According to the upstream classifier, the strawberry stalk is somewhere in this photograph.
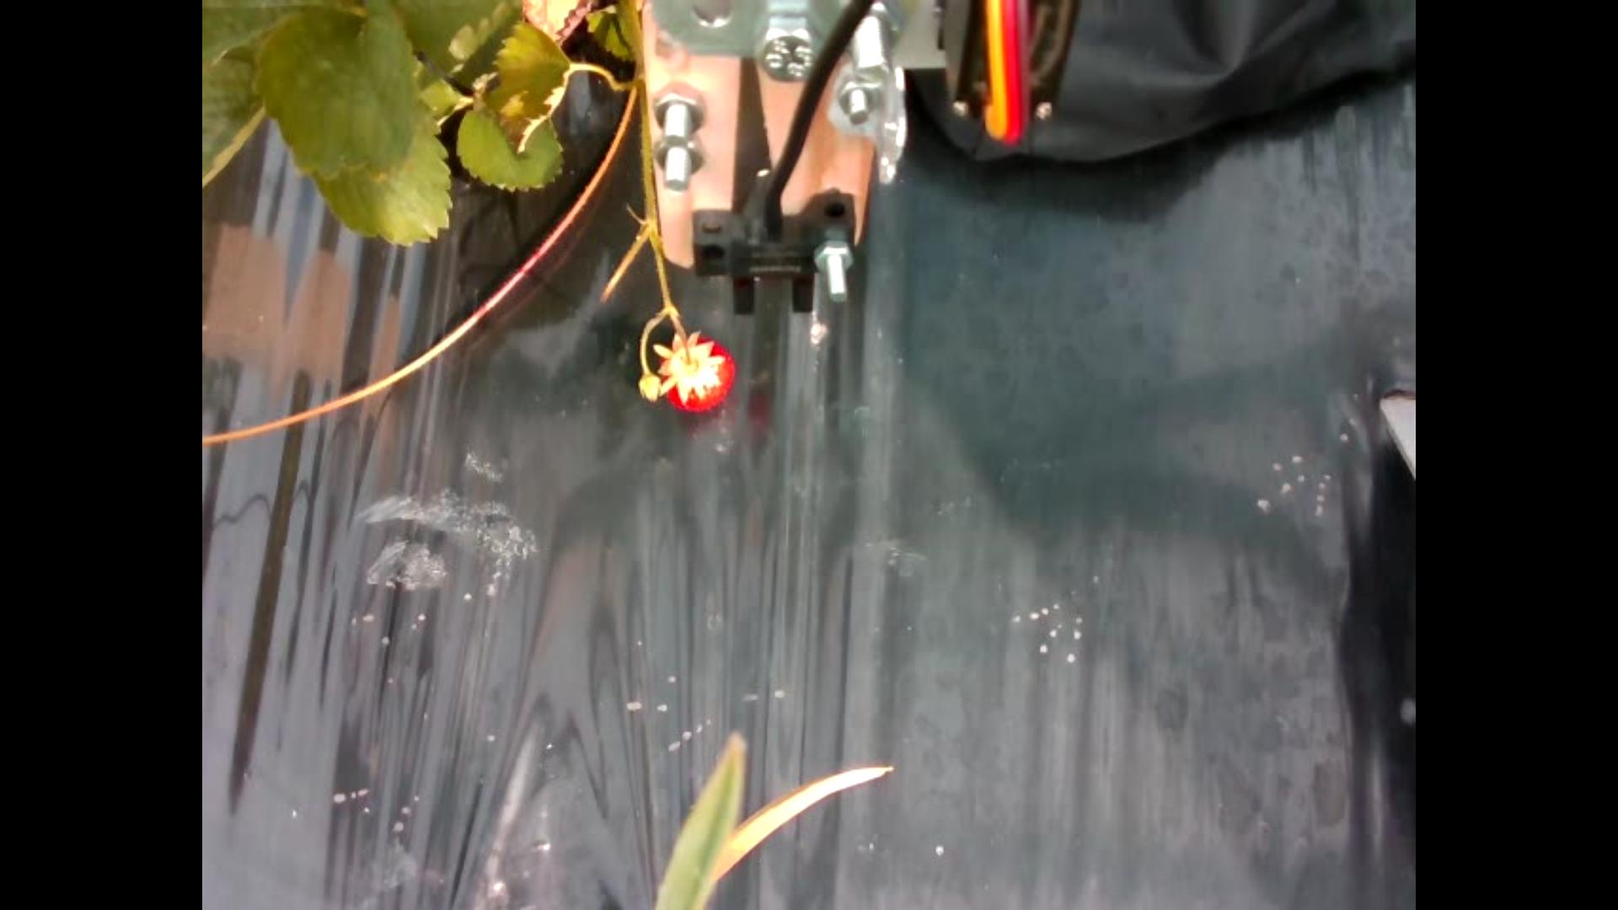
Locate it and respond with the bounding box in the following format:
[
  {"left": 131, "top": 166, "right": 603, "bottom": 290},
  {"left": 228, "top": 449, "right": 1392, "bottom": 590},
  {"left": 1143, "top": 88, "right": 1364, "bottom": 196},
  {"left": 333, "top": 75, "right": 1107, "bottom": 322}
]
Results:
[{"left": 657, "top": 281, "right": 699, "bottom": 355}]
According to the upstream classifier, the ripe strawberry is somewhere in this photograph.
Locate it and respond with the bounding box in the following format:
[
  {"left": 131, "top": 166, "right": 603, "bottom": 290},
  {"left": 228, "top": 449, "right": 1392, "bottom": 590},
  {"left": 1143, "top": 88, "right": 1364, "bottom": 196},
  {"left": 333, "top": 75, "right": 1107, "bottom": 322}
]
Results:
[{"left": 655, "top": 330, "right": 750, "bottom": 419}]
